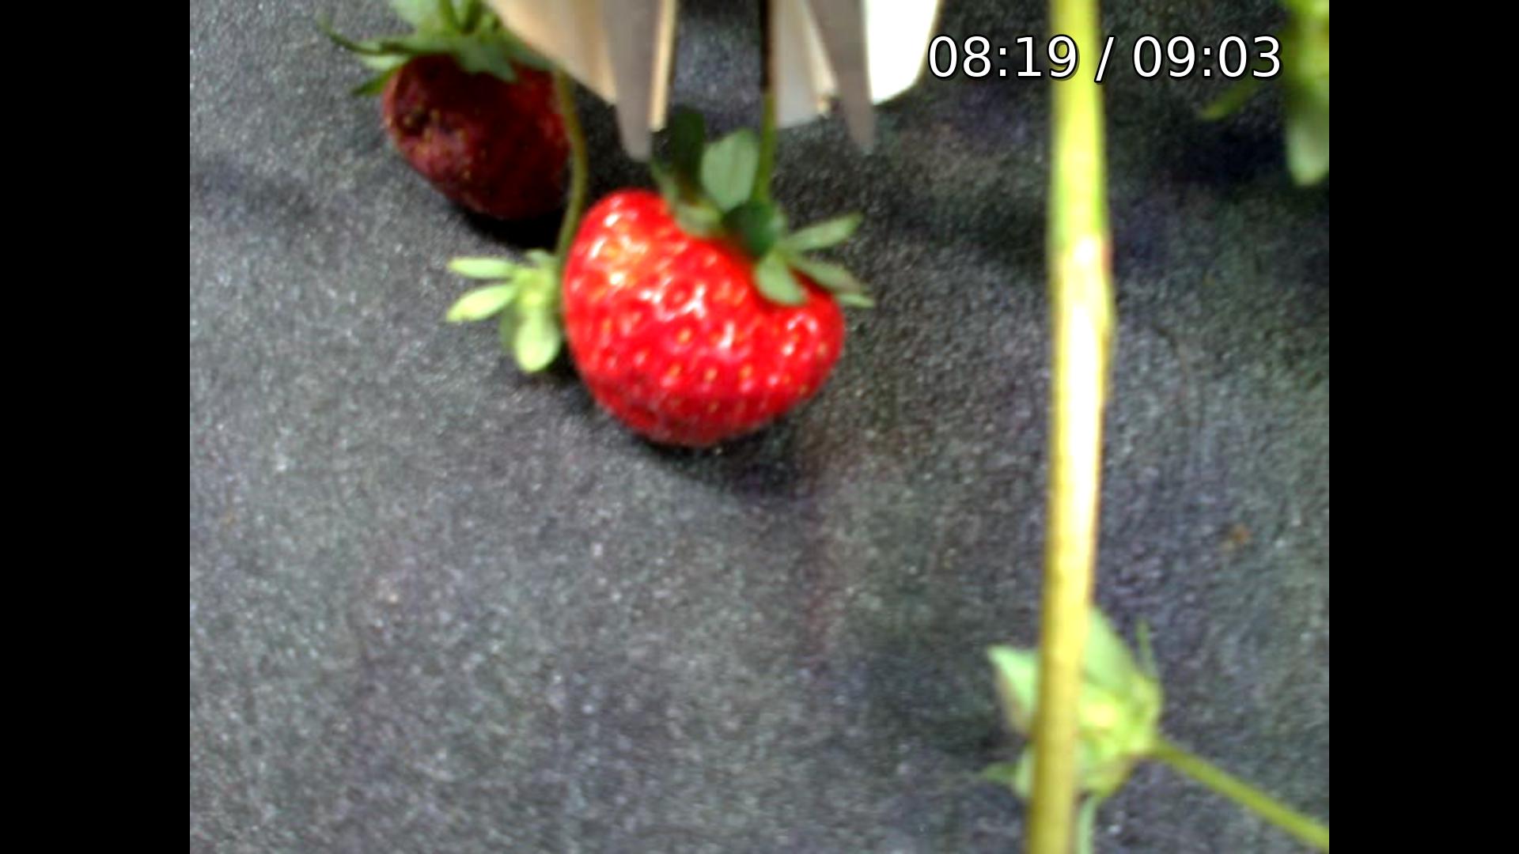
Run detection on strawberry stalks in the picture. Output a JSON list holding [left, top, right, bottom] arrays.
[[445, 3, 509, 58], [524, 191, 591, 318], [733, 0, 797, 284], [1096, 645, 1260, 825]]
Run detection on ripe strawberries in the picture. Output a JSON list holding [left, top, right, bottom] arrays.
[[347, 48, 600, 241], [547, 179, 879, 444]]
